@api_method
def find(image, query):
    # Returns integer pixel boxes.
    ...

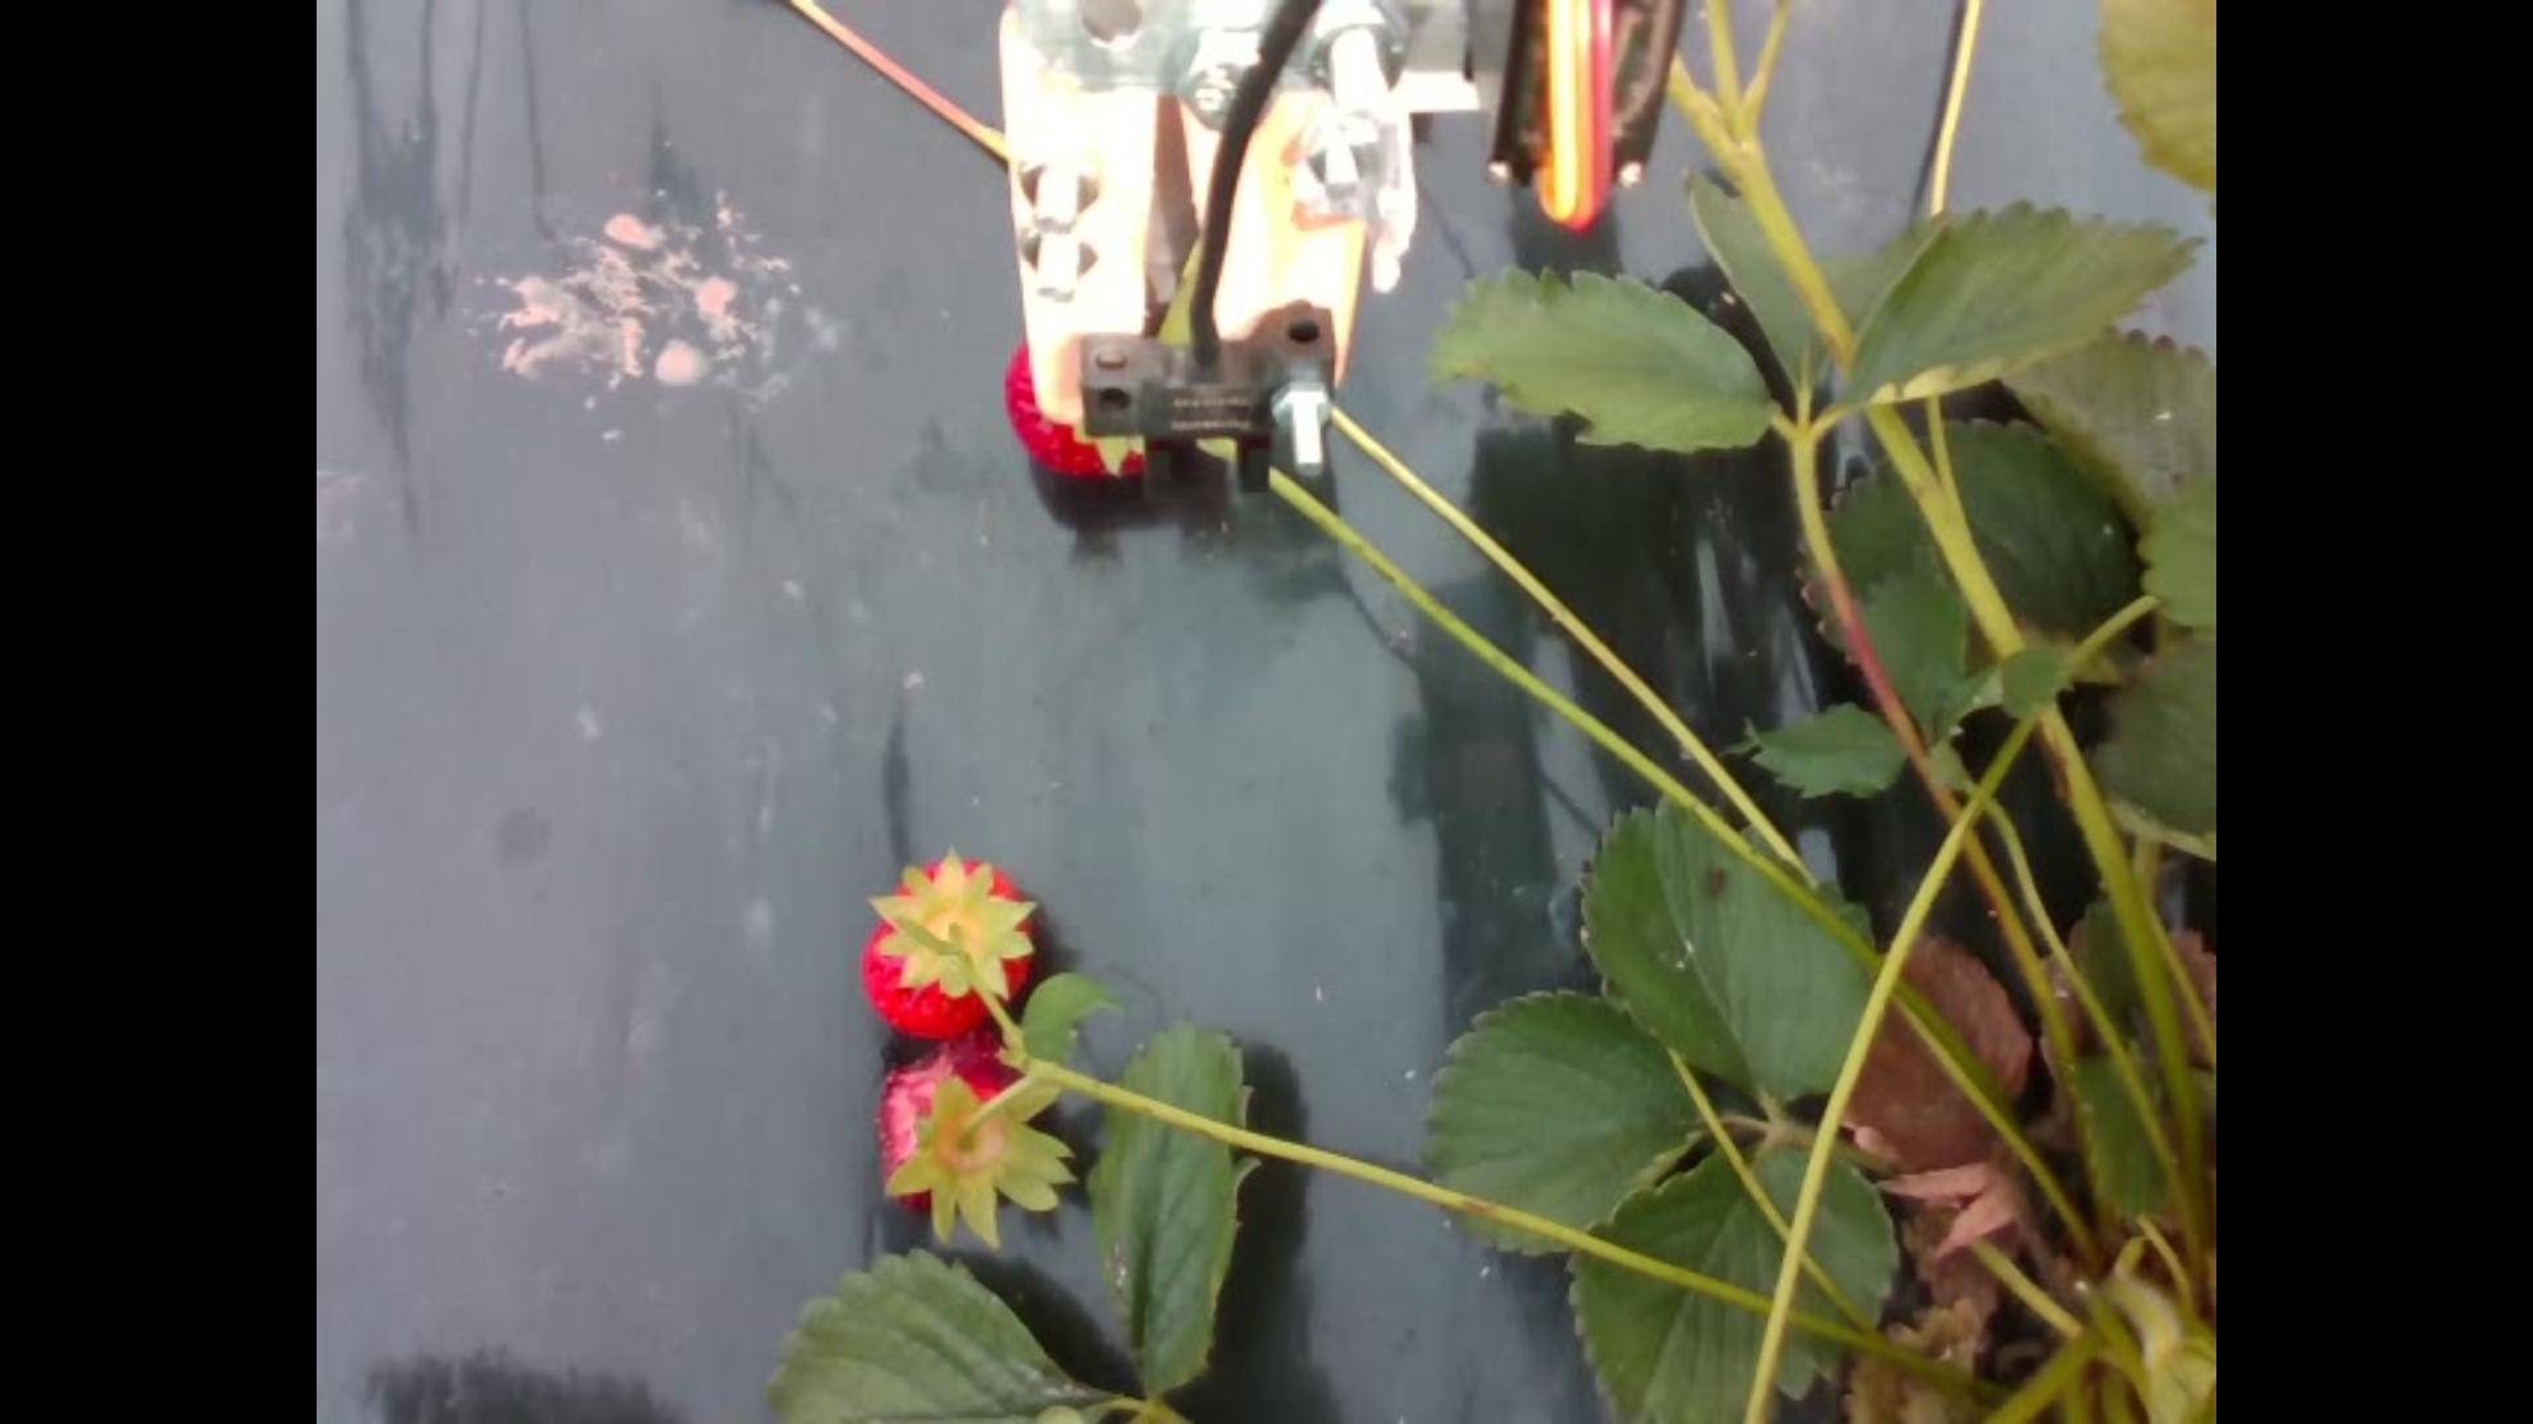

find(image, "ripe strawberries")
[985,310,1170,510]
[879,1038,1077,1245]
[865,860,1059,1047]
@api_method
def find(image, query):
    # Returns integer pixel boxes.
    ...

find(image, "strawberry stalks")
[906,918,1058,1057]
[922,1065,1063,1150]
[1086,368,1296,494]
